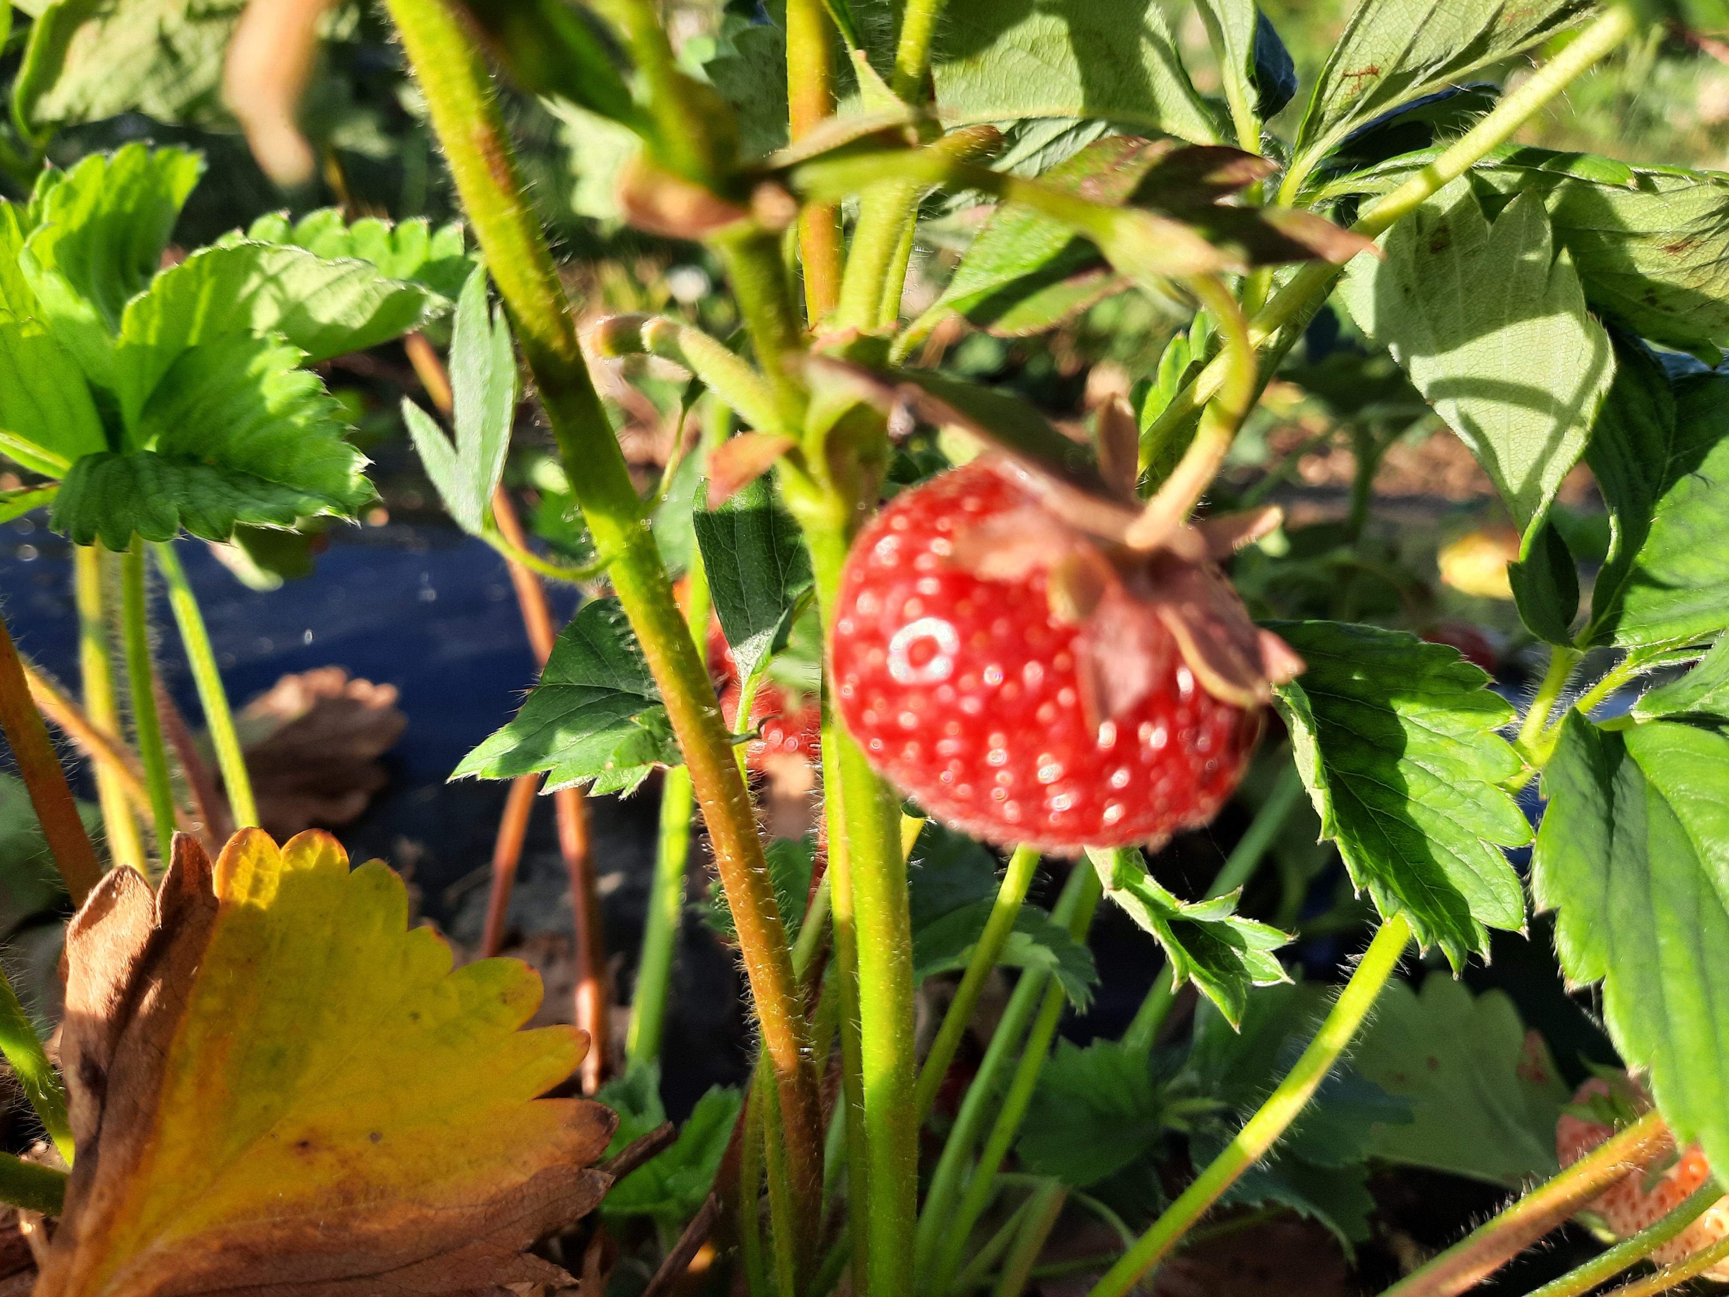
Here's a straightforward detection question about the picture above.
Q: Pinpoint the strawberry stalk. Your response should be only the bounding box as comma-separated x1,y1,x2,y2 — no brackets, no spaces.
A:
1041,266,1271,593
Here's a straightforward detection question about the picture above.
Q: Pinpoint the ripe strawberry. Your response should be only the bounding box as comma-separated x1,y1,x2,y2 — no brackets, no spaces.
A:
839,449,1295,843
